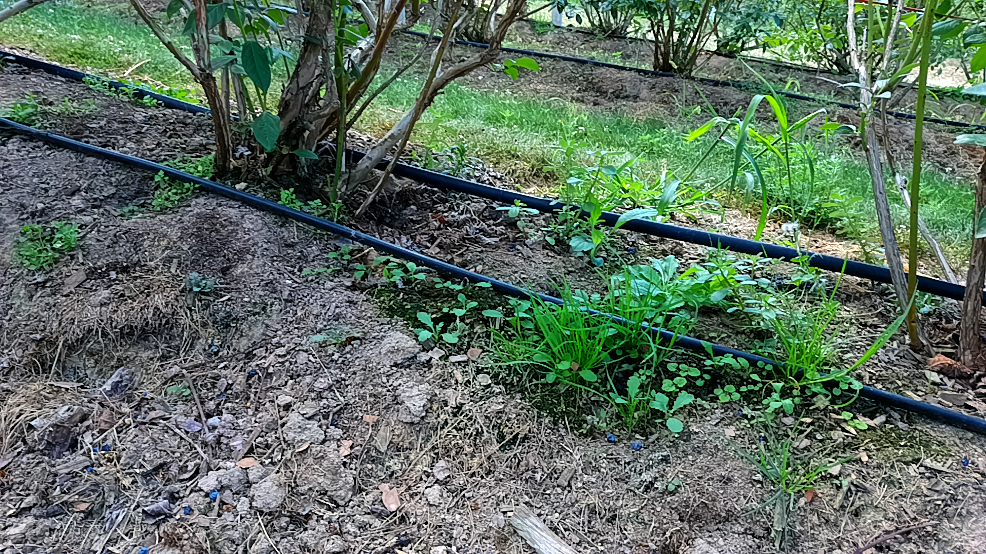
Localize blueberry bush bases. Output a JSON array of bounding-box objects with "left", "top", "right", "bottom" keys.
[
  {"left": 641, "top": 24, "right": 715, "bottom": 92},
  {"left": 578, "top": 6, "right": 633, "bottom": 55},
  {"left": 867, "top": 206, "right": 985, "bottom": 400},
  {"left": 170, "top": 58, "right": 452, "bottom": 272}
]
